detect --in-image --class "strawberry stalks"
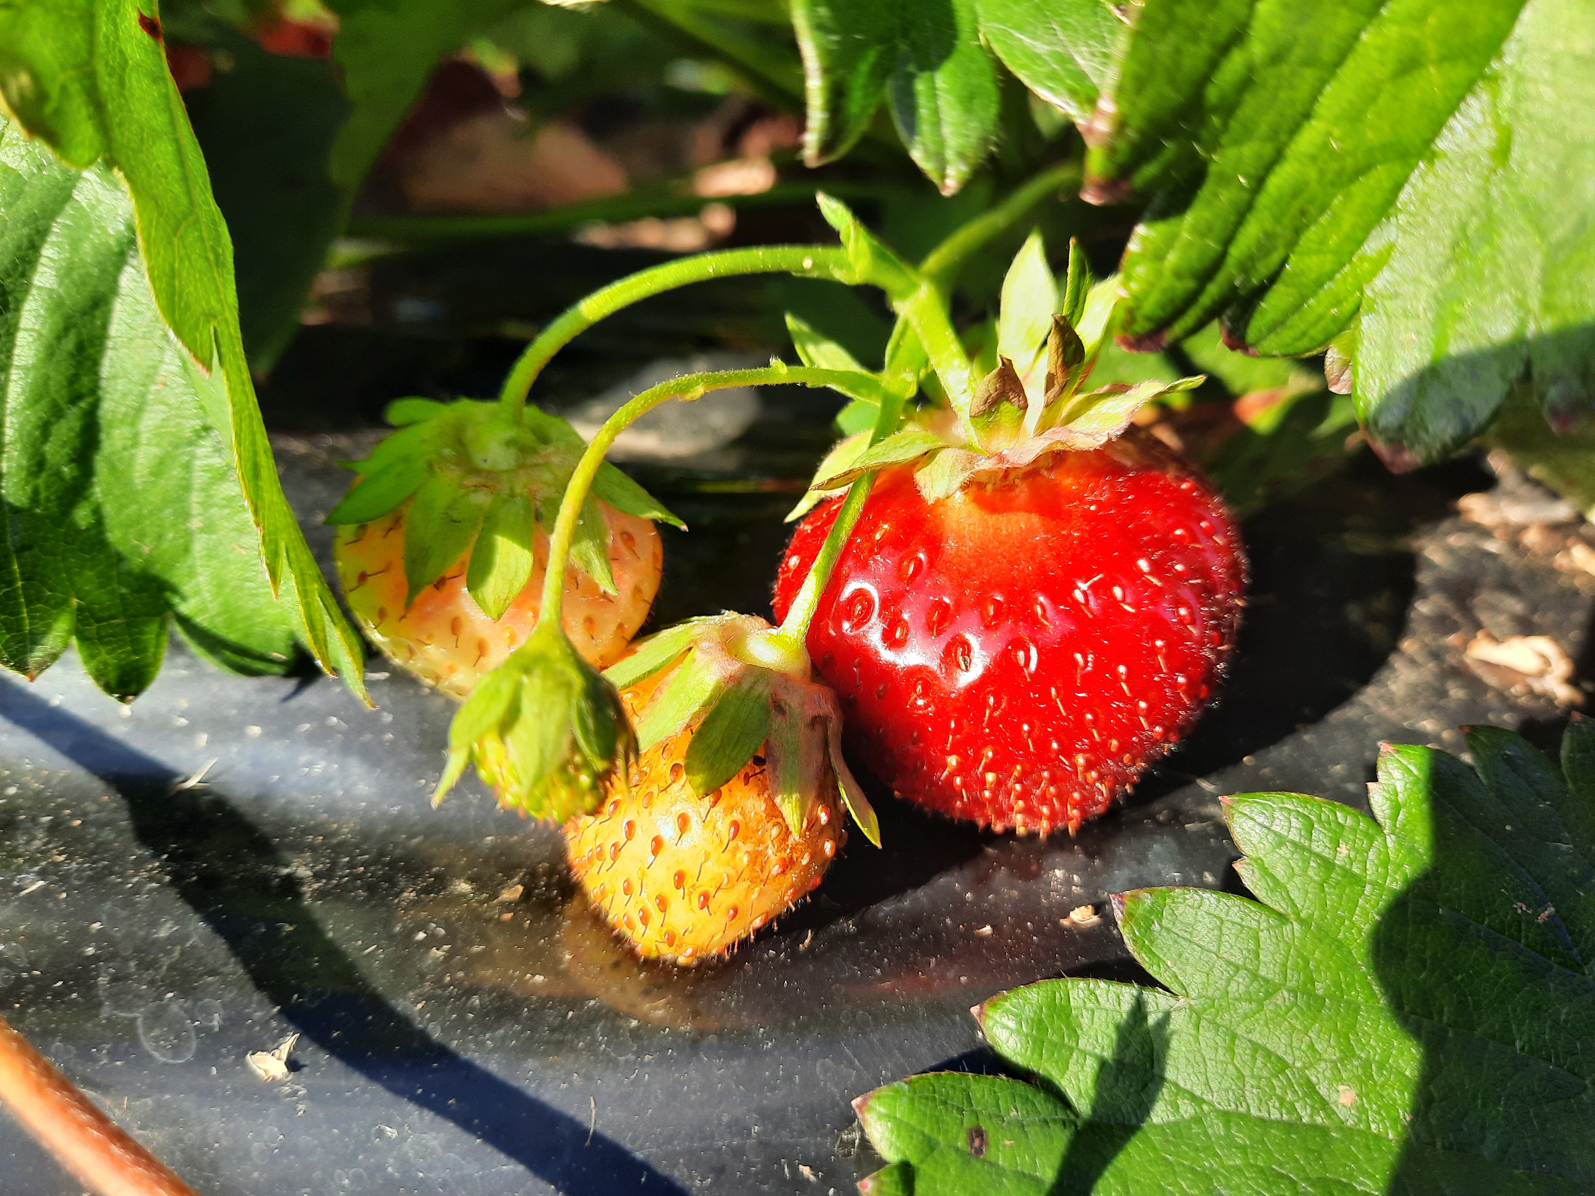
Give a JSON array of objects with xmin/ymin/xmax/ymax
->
[
  {"xmin": 473, "ymin": 253, "xmax": 758, "ymax": 453},
  {"xmin": 731, "ymin": 453, "xmax": 886, "ymax": 689},
  {"xmin": 884, "ymin": 239, "xmax": 1071, "ymax": 482}
]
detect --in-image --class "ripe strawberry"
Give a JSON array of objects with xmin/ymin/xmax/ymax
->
[{"xmin": 774, "ymin": 426, "xmax": 1259, "ymax": 840}]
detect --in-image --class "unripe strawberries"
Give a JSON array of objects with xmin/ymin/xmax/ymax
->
[
  {"xmin": 562, "ymin": 635, "xmax": 839, "ymax": 959},
  {"xmin": 330, "ymin": 438, "xmax": 674, "ymax": 704}
]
